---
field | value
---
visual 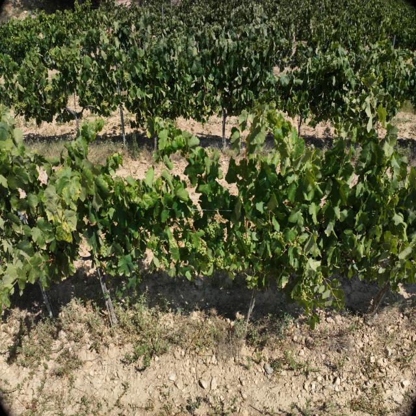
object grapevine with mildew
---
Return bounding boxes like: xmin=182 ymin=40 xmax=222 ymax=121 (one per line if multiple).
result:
xmin=0 ymin=134 xmax=149 ymax=344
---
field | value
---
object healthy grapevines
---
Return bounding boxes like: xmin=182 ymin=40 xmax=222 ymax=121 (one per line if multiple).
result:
xmin=150 ymin=109 xmax=330 ymax=356
xmin=324 ymin=119 xmax=416 ymax=337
